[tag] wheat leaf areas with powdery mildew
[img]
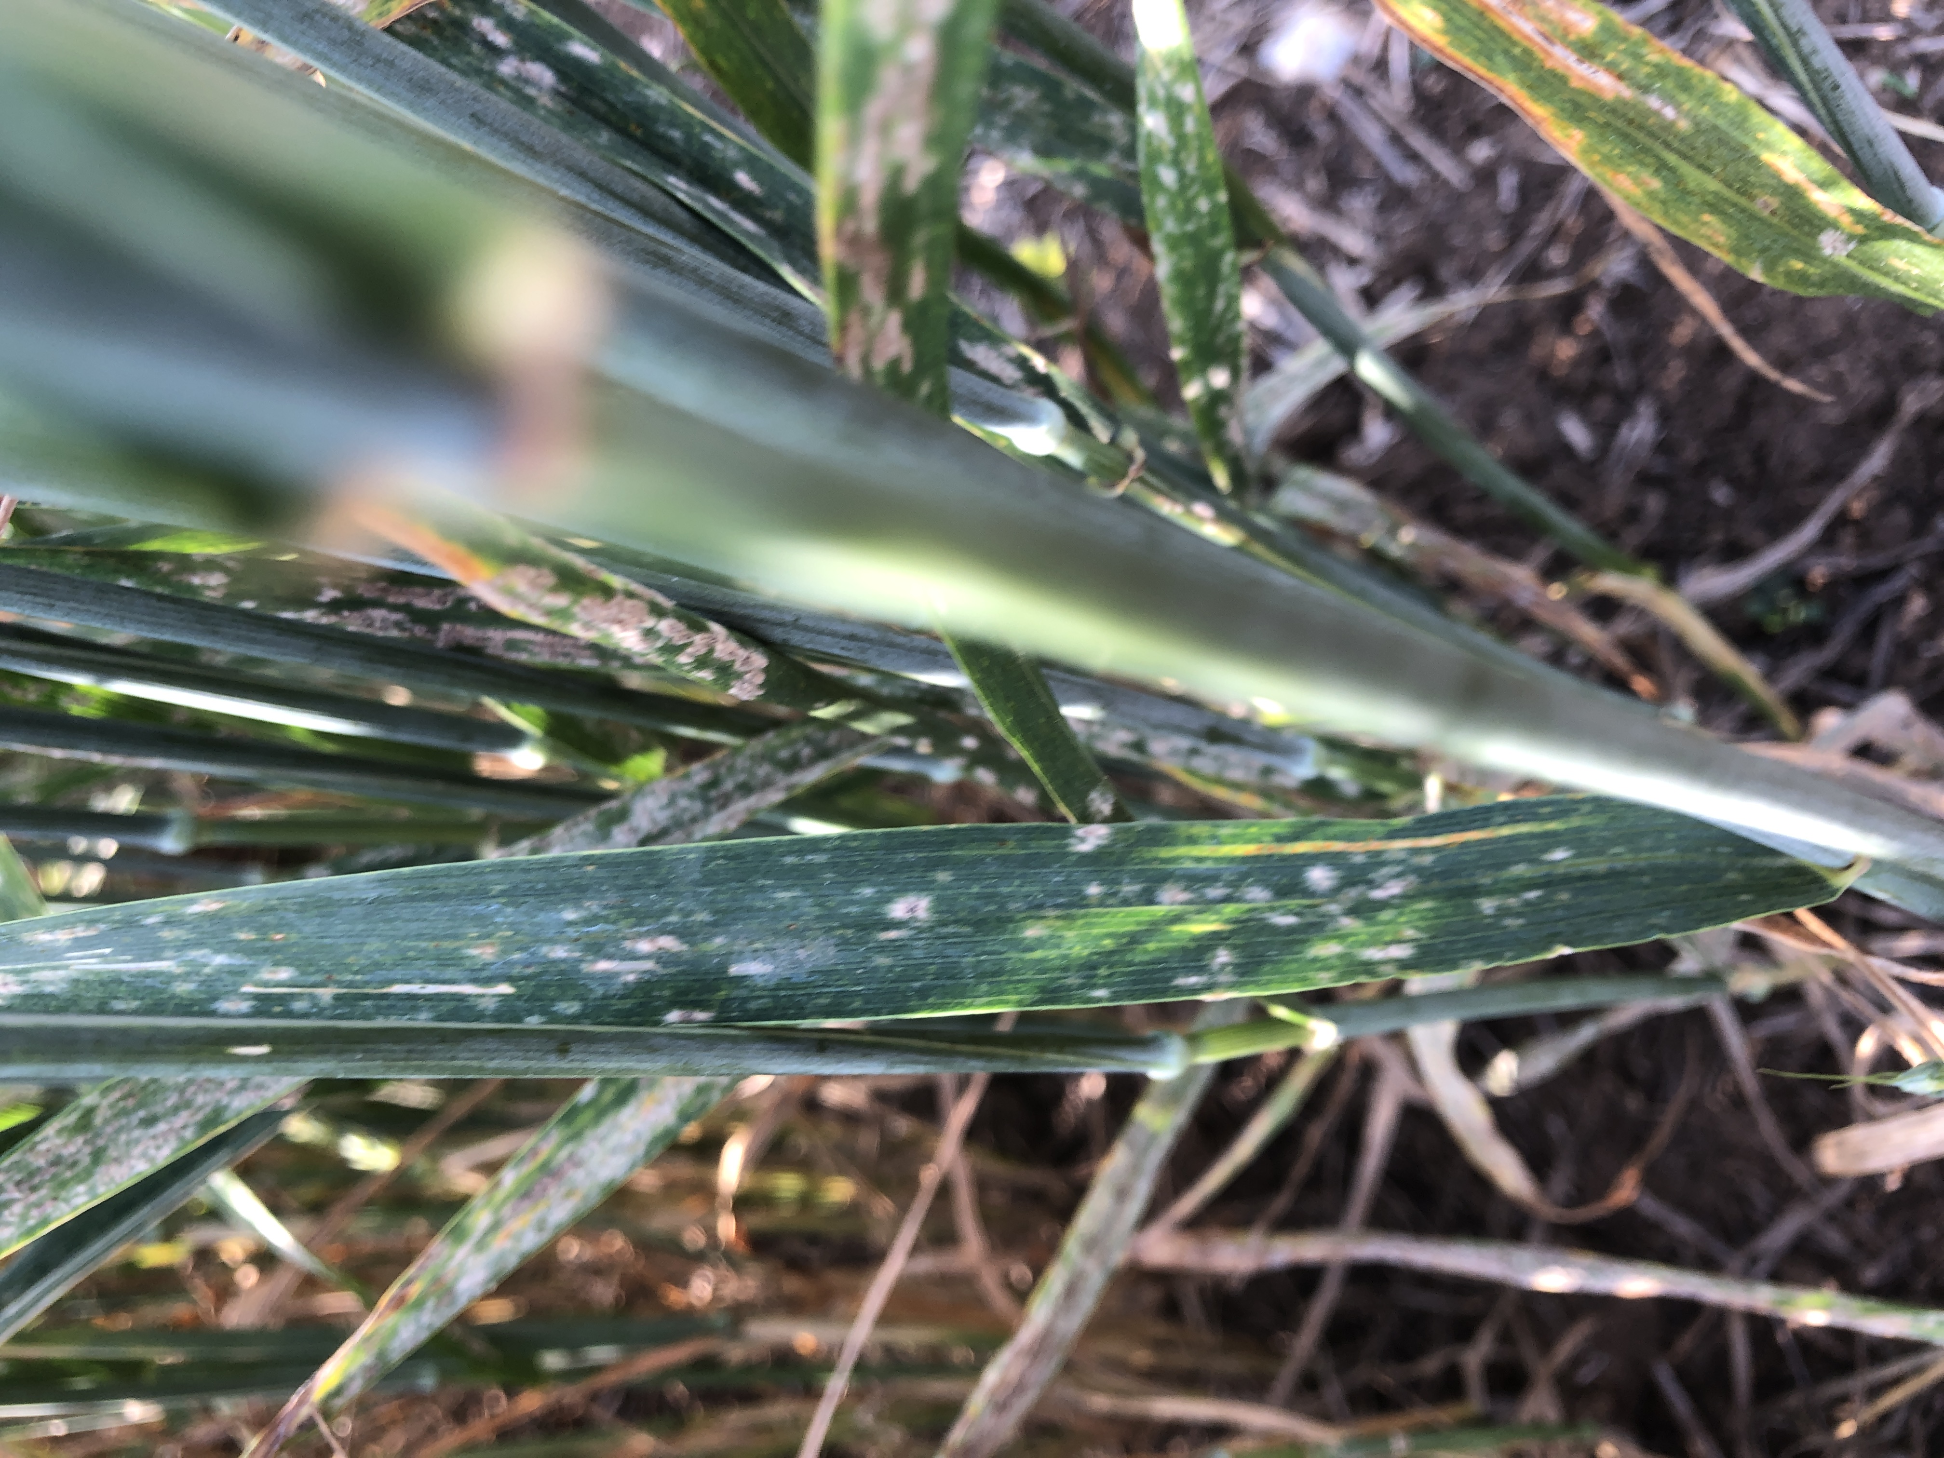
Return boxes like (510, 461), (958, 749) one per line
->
(395, 39), (807, 314)
(59, 488), (638, 681)
(807, 0), (1011, 376)
(1102, 0), (1284, 488)
(488, 695), (893, 890)
(915, 1038), (1228, 1458)
(922, 261), (1113, 448)
(968, 1), (1161, 199)
(395, 491), (807, 652)
(1356, 49), (1944, 333)
(3, 767), (1699, 1067)
(293, 1067), (708, 1407)
(3, 1035), (304, 1289)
